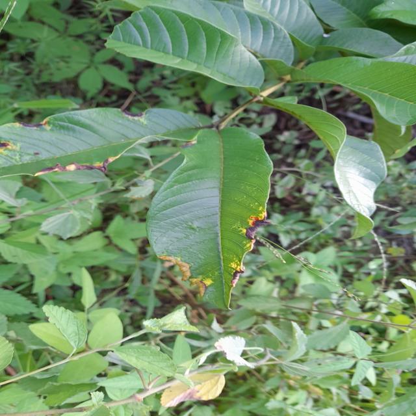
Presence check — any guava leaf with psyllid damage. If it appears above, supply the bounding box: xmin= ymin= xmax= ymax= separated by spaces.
xmin=120 ymin=124 xmax=278 ymax=336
